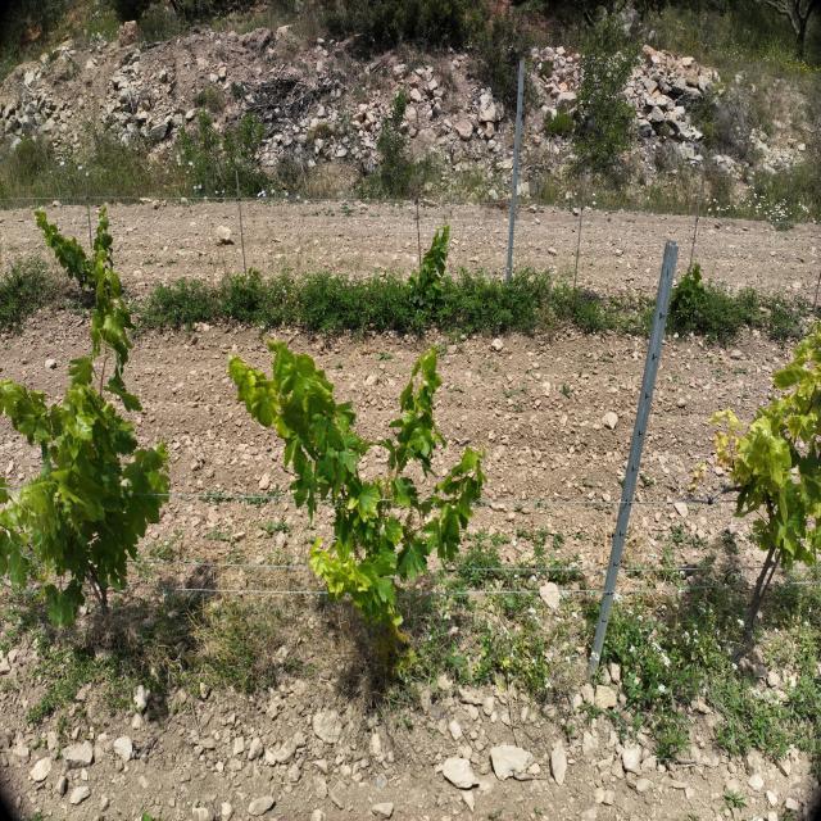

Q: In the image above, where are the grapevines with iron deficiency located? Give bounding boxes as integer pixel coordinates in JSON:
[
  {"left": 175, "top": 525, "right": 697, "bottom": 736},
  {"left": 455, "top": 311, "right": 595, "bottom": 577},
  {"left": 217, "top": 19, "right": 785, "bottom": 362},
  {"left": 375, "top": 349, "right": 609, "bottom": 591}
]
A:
[
  {"left": 221, "top": 326, "right": 499, "bottom": 676},
  {"left": 0, "top": 267, "right": 174, "bottom": 662},
  {"left": 702, "top": 307, "right": 821, "bottom": 662}
]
